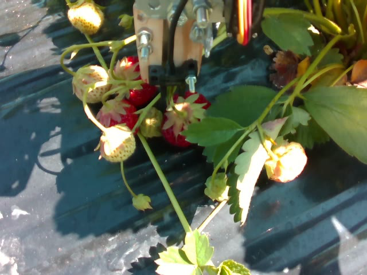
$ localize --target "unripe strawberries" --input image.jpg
[268,145,302,178]
[98,127,136,161]
[70,69,110,103]
[68,3,105,30]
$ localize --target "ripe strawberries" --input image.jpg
[126,80,155,102]
[165,95,205,142]
[113,59,147,76]
[105,101,137,131]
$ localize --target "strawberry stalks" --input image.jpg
[57,45,80,79]
[86,109,111,145]
[163,87,189,122]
